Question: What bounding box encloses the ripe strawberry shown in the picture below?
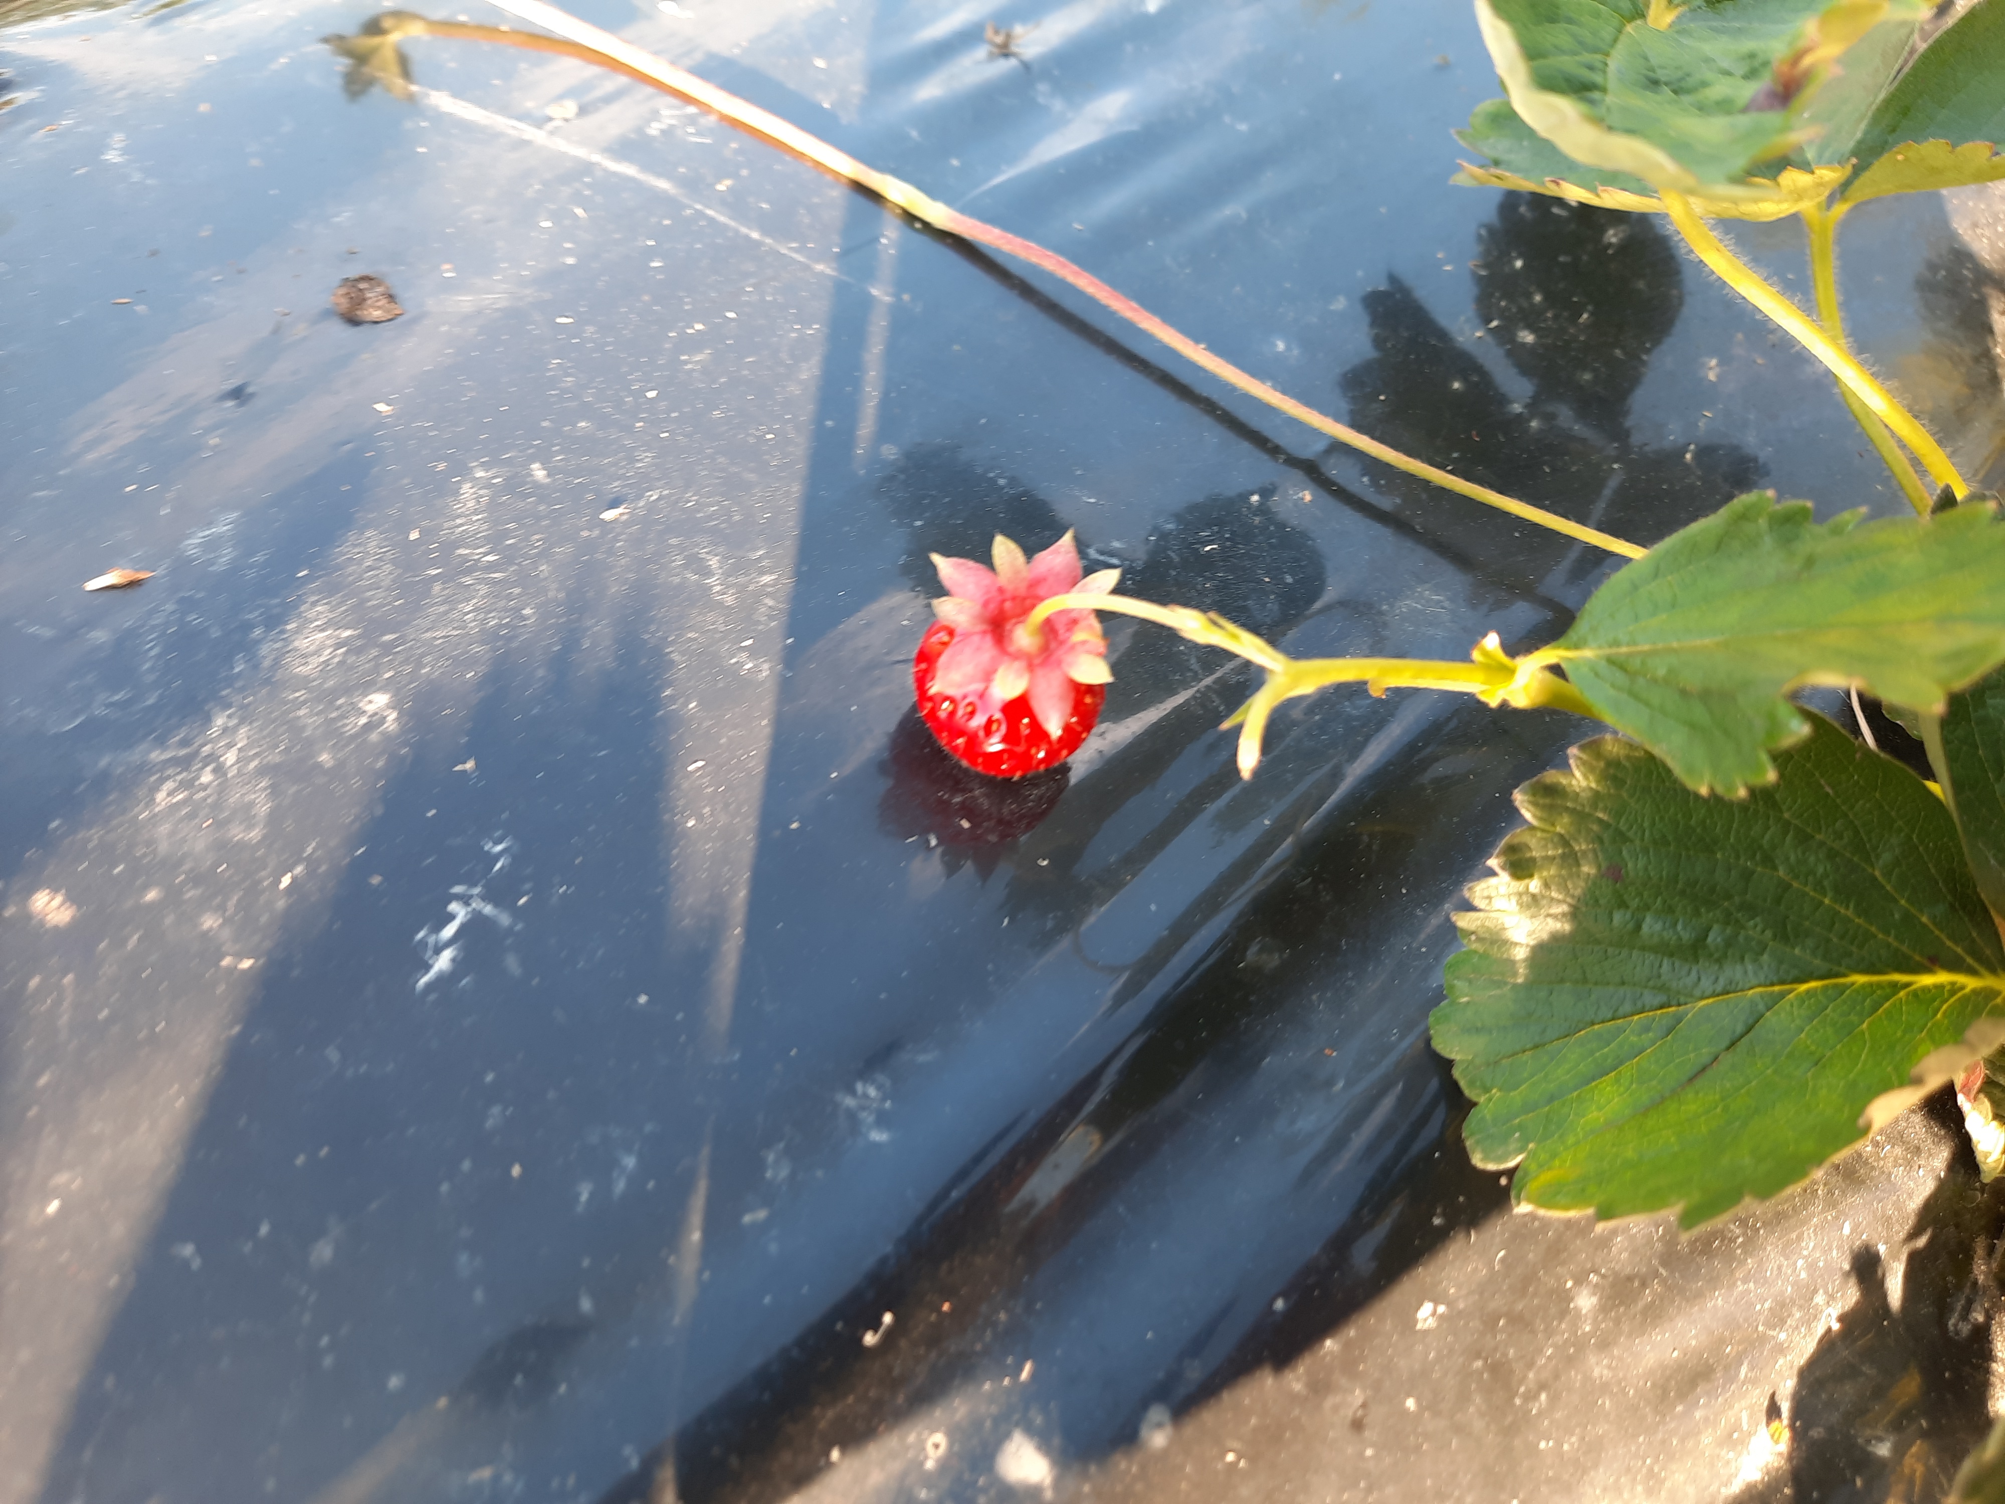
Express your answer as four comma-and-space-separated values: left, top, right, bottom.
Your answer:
929, 588, 1108, 772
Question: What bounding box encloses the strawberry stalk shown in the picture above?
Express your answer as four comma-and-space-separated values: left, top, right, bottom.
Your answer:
973, 584, 1220, 656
